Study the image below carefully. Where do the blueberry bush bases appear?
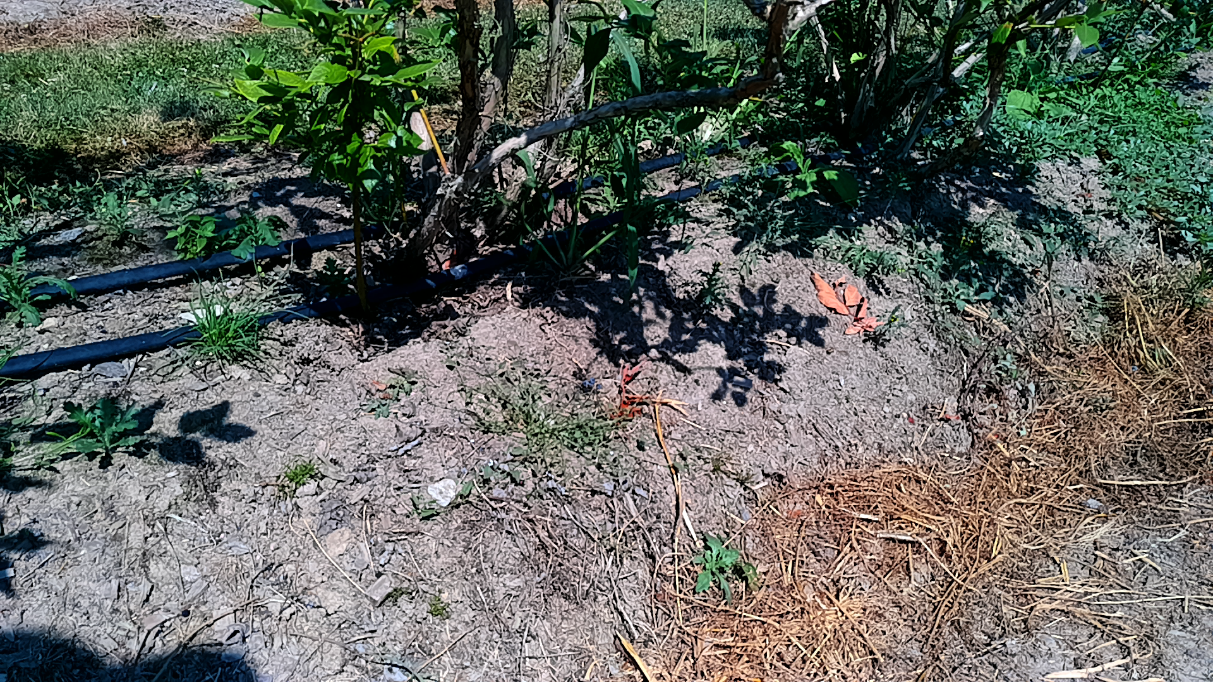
[767,50,967,224]
[314,90,615,339]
